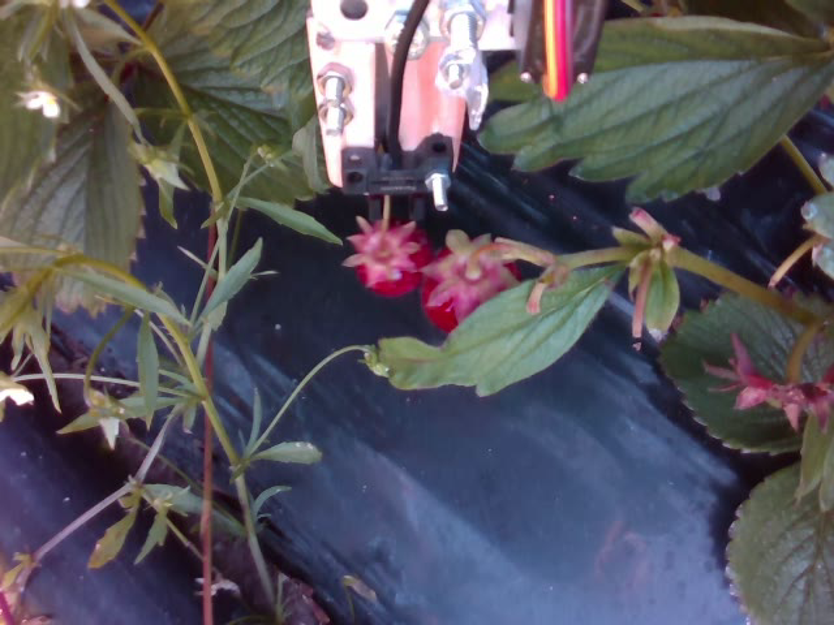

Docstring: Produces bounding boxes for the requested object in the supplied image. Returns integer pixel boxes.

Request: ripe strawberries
[351,216,426,296]
[419,239,524,329]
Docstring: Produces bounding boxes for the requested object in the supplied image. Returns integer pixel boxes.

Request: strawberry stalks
[370,191,392,254]
[457,229,536,282]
